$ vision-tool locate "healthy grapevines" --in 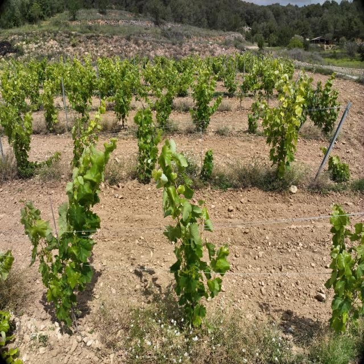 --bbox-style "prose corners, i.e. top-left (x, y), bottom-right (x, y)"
top-left (151, 140), bottom-right (233, 338)
top-left (16, 127), bottom-right (121, 337)
top-left (320, 197), bottom-right (364, 351)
